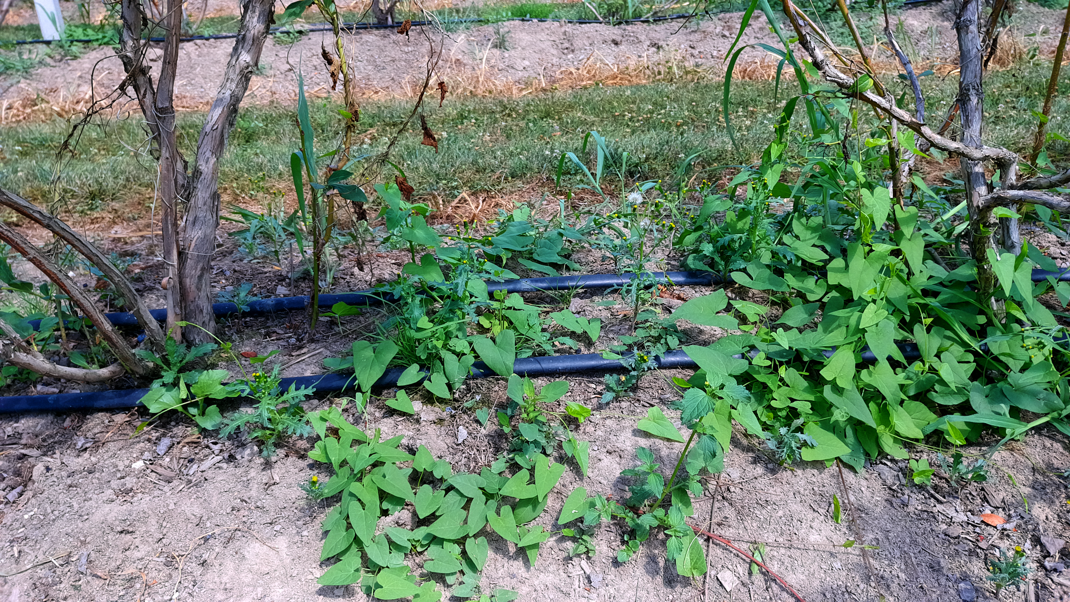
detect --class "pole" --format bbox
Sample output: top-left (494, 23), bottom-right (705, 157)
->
top-left (35, 3), bottom-right (63, 46)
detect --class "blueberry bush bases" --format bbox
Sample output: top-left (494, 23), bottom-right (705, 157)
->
top-left (782, 72), bottom-right (1066, 468)
top-left (359, 2), bottom-right (427, 41)
top-left (11, 186), bottom-right (296, 452)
